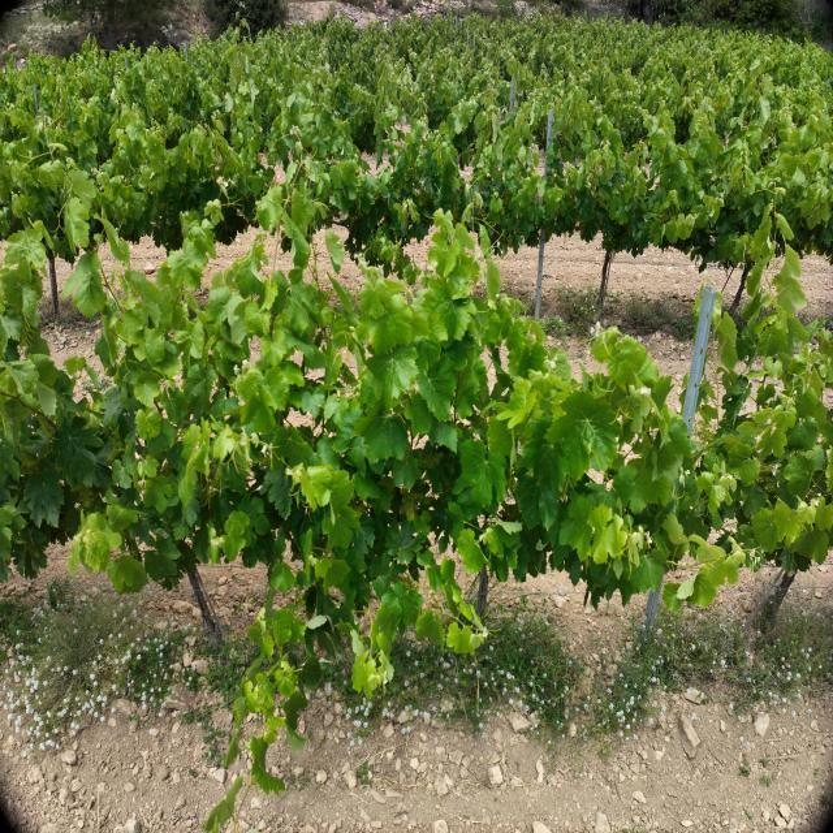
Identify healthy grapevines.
[325,238,698,699]
[0,225,357,674]
[686,258,833,659]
